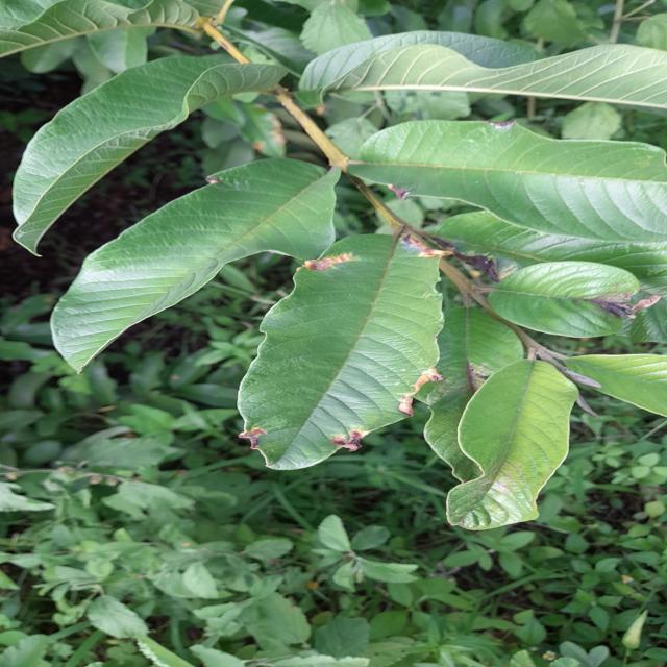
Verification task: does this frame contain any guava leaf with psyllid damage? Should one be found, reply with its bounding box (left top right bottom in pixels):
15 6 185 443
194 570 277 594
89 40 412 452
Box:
223 222 465 500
